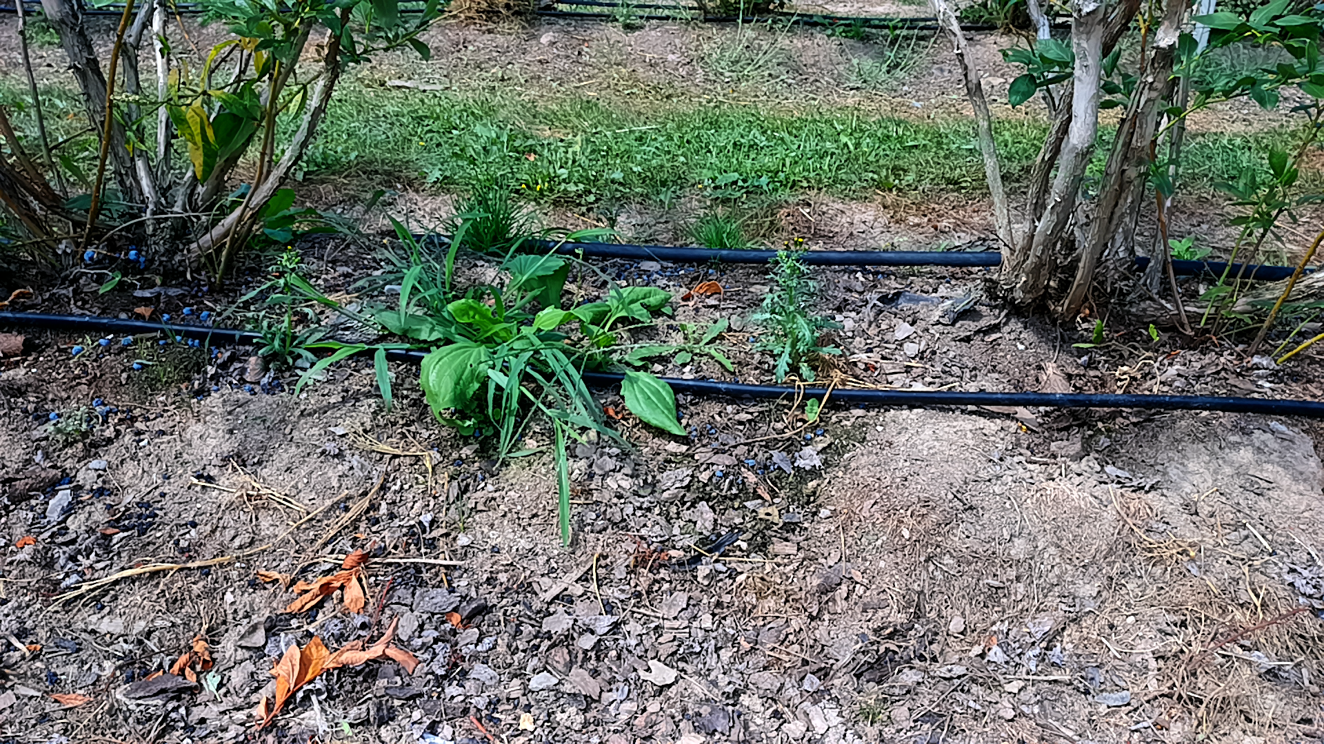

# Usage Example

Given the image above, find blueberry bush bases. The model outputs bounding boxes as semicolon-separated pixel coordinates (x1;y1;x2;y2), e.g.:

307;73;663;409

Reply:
947;74;1264;384
5;110;300;353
